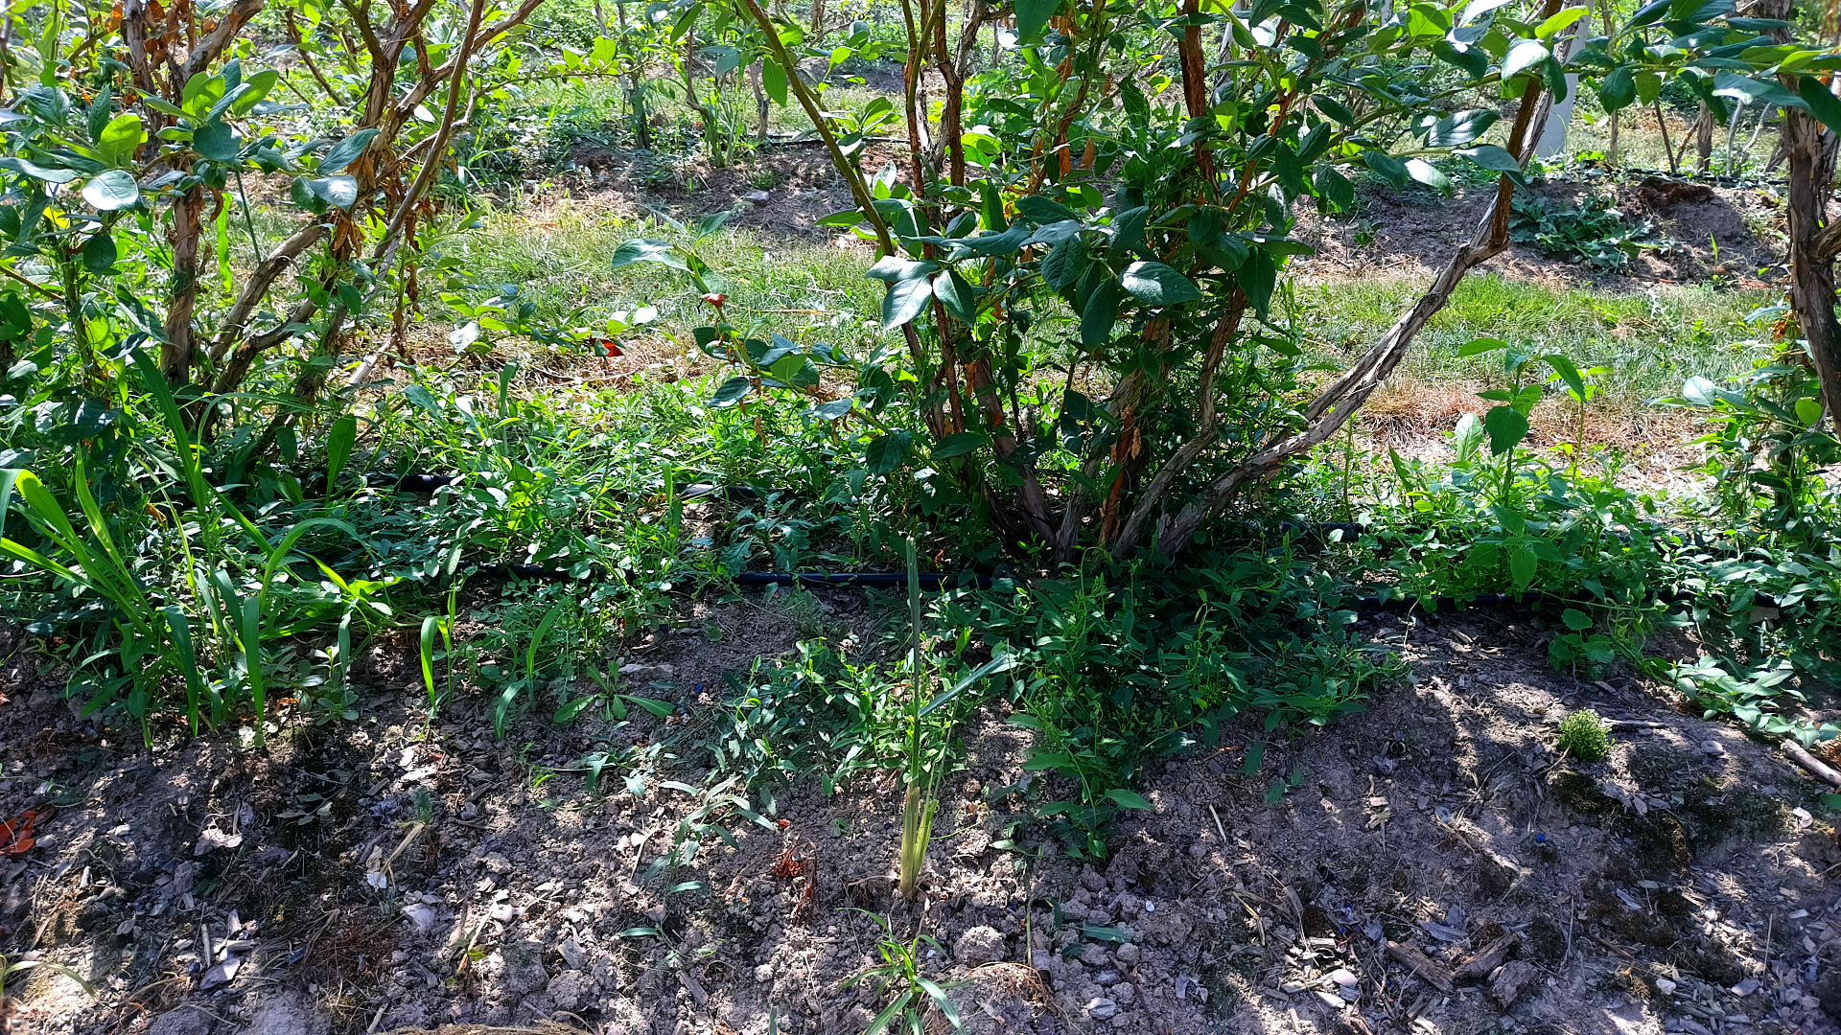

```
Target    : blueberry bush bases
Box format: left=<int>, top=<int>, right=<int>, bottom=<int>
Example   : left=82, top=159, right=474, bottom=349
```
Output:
left=863, top=308, right=1397, bottom=699
left=8, top=276, right=369, bottom=668
left=1719, top=292, right=1841, bottom=651
left=601, top=85, right=782, bottom=166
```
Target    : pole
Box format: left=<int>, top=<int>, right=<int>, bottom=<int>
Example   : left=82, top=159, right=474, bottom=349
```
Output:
left=1529, top=24, right=1585, bottom=186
